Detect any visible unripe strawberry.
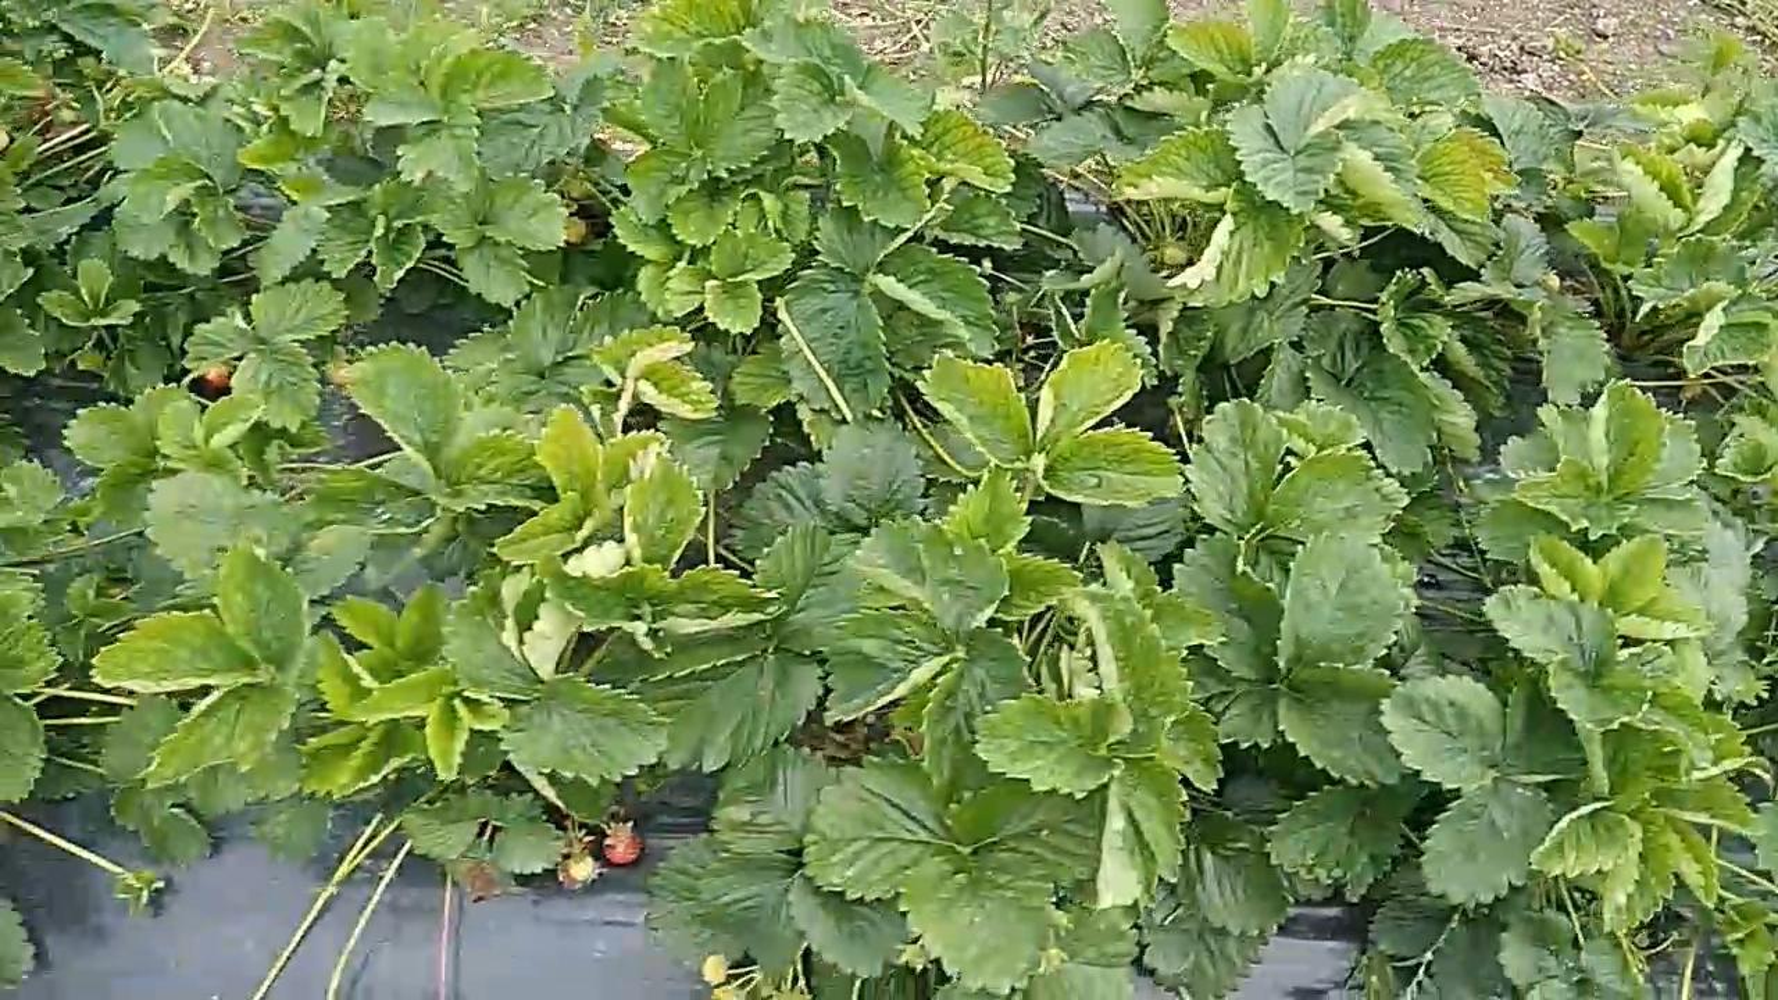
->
[701,947,732,984]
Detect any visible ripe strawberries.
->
[556,848,602,890]
[602,824,642,865]
[190,352,239,397]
